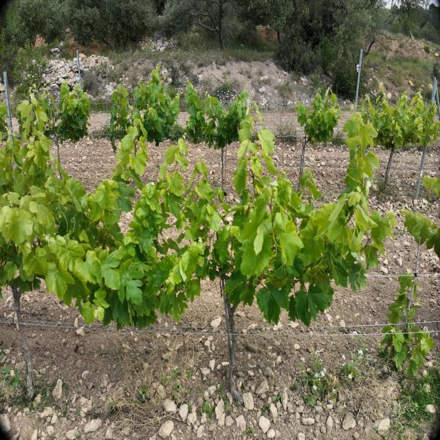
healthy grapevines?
[0,118,109,410]
[96,121,400,419]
